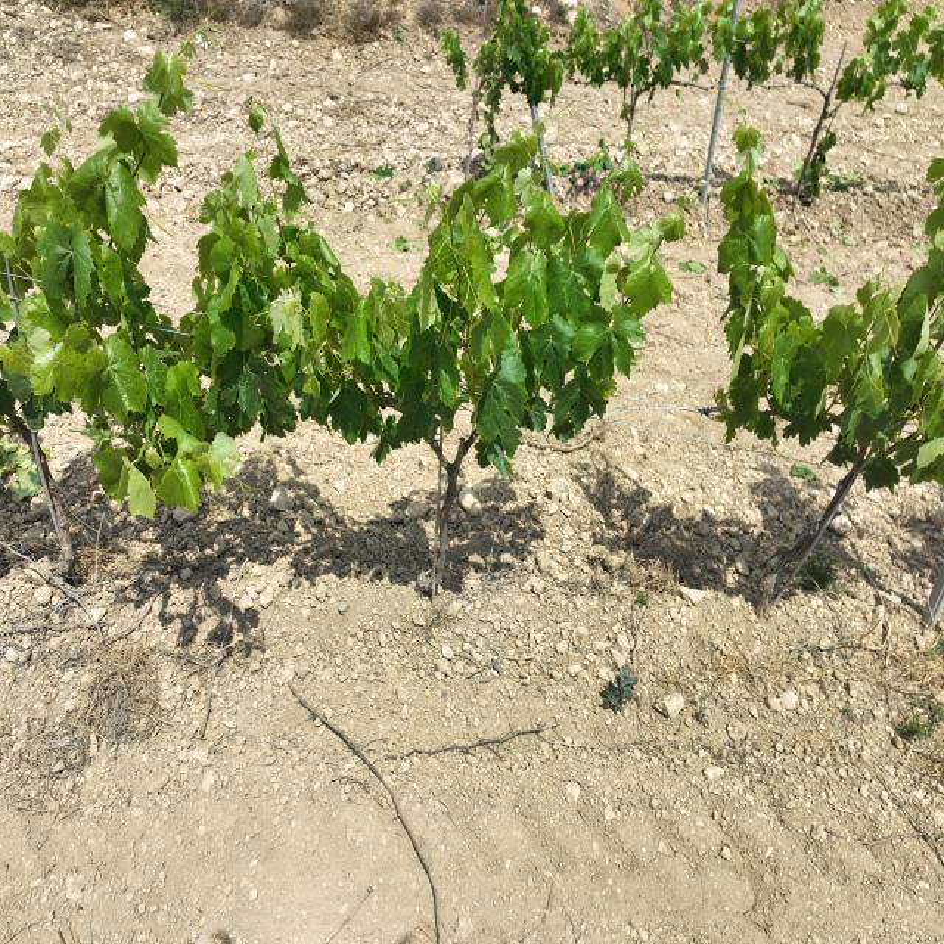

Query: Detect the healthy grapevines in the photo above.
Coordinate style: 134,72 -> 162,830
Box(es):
0,93 -> 180,618
695,125 -> 944,639
173,158 -> 678,630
